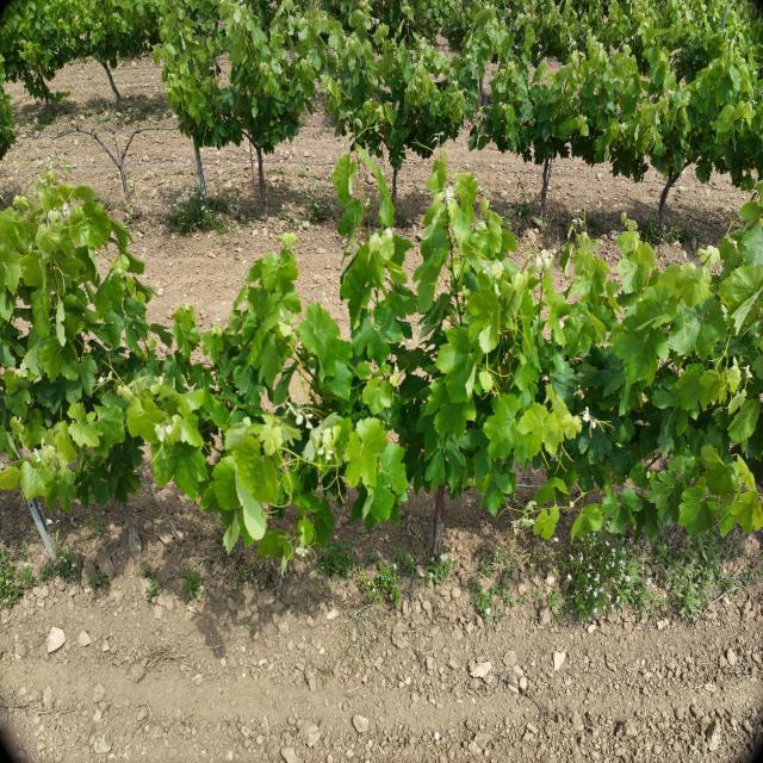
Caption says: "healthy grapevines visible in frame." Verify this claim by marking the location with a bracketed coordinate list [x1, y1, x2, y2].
[634, 209, 763, 598]
[146, 180, 635, 595]
[0, 178, 148, 594]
